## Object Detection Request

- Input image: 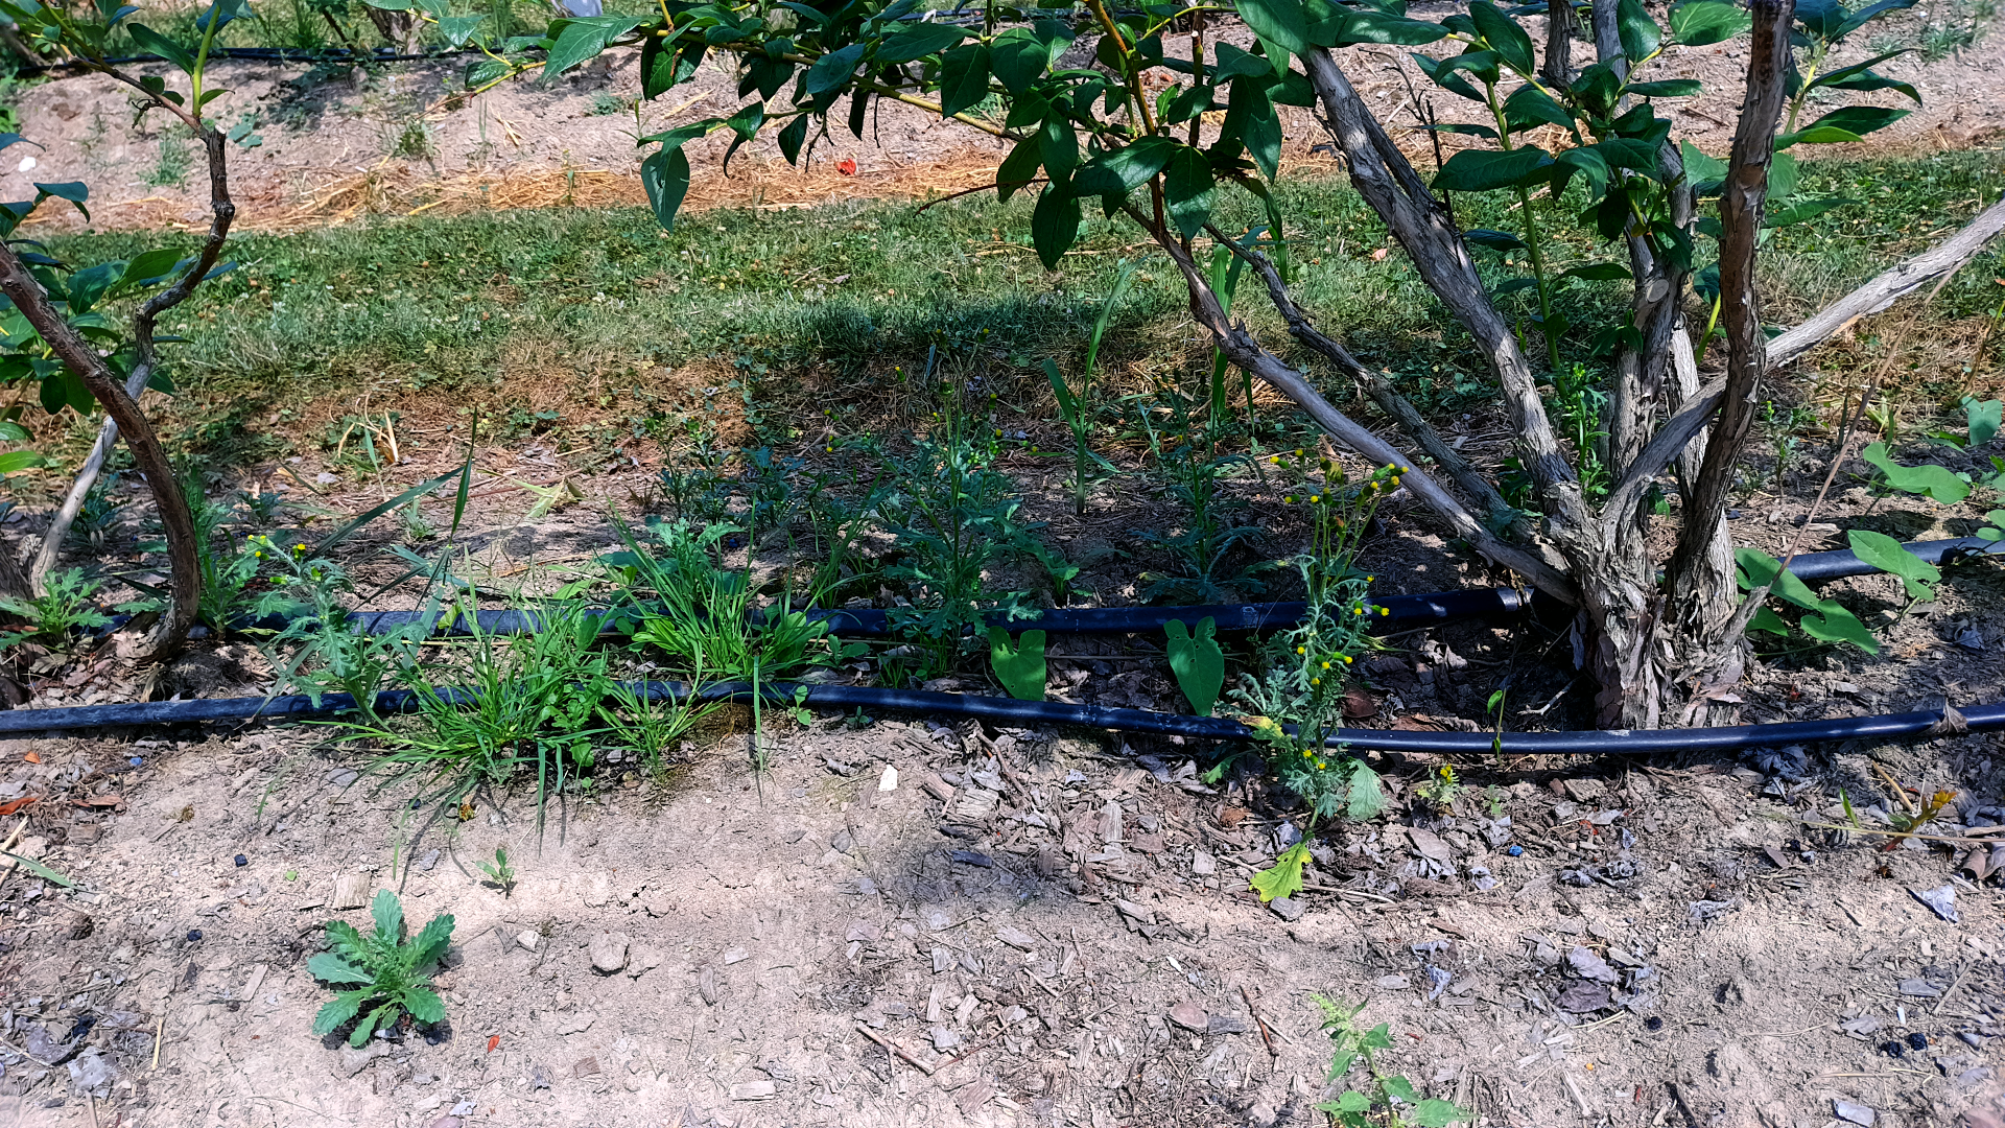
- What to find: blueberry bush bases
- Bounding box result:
[0,405,284,786]
[328,15,447,86]
[1332,273,1795,809]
